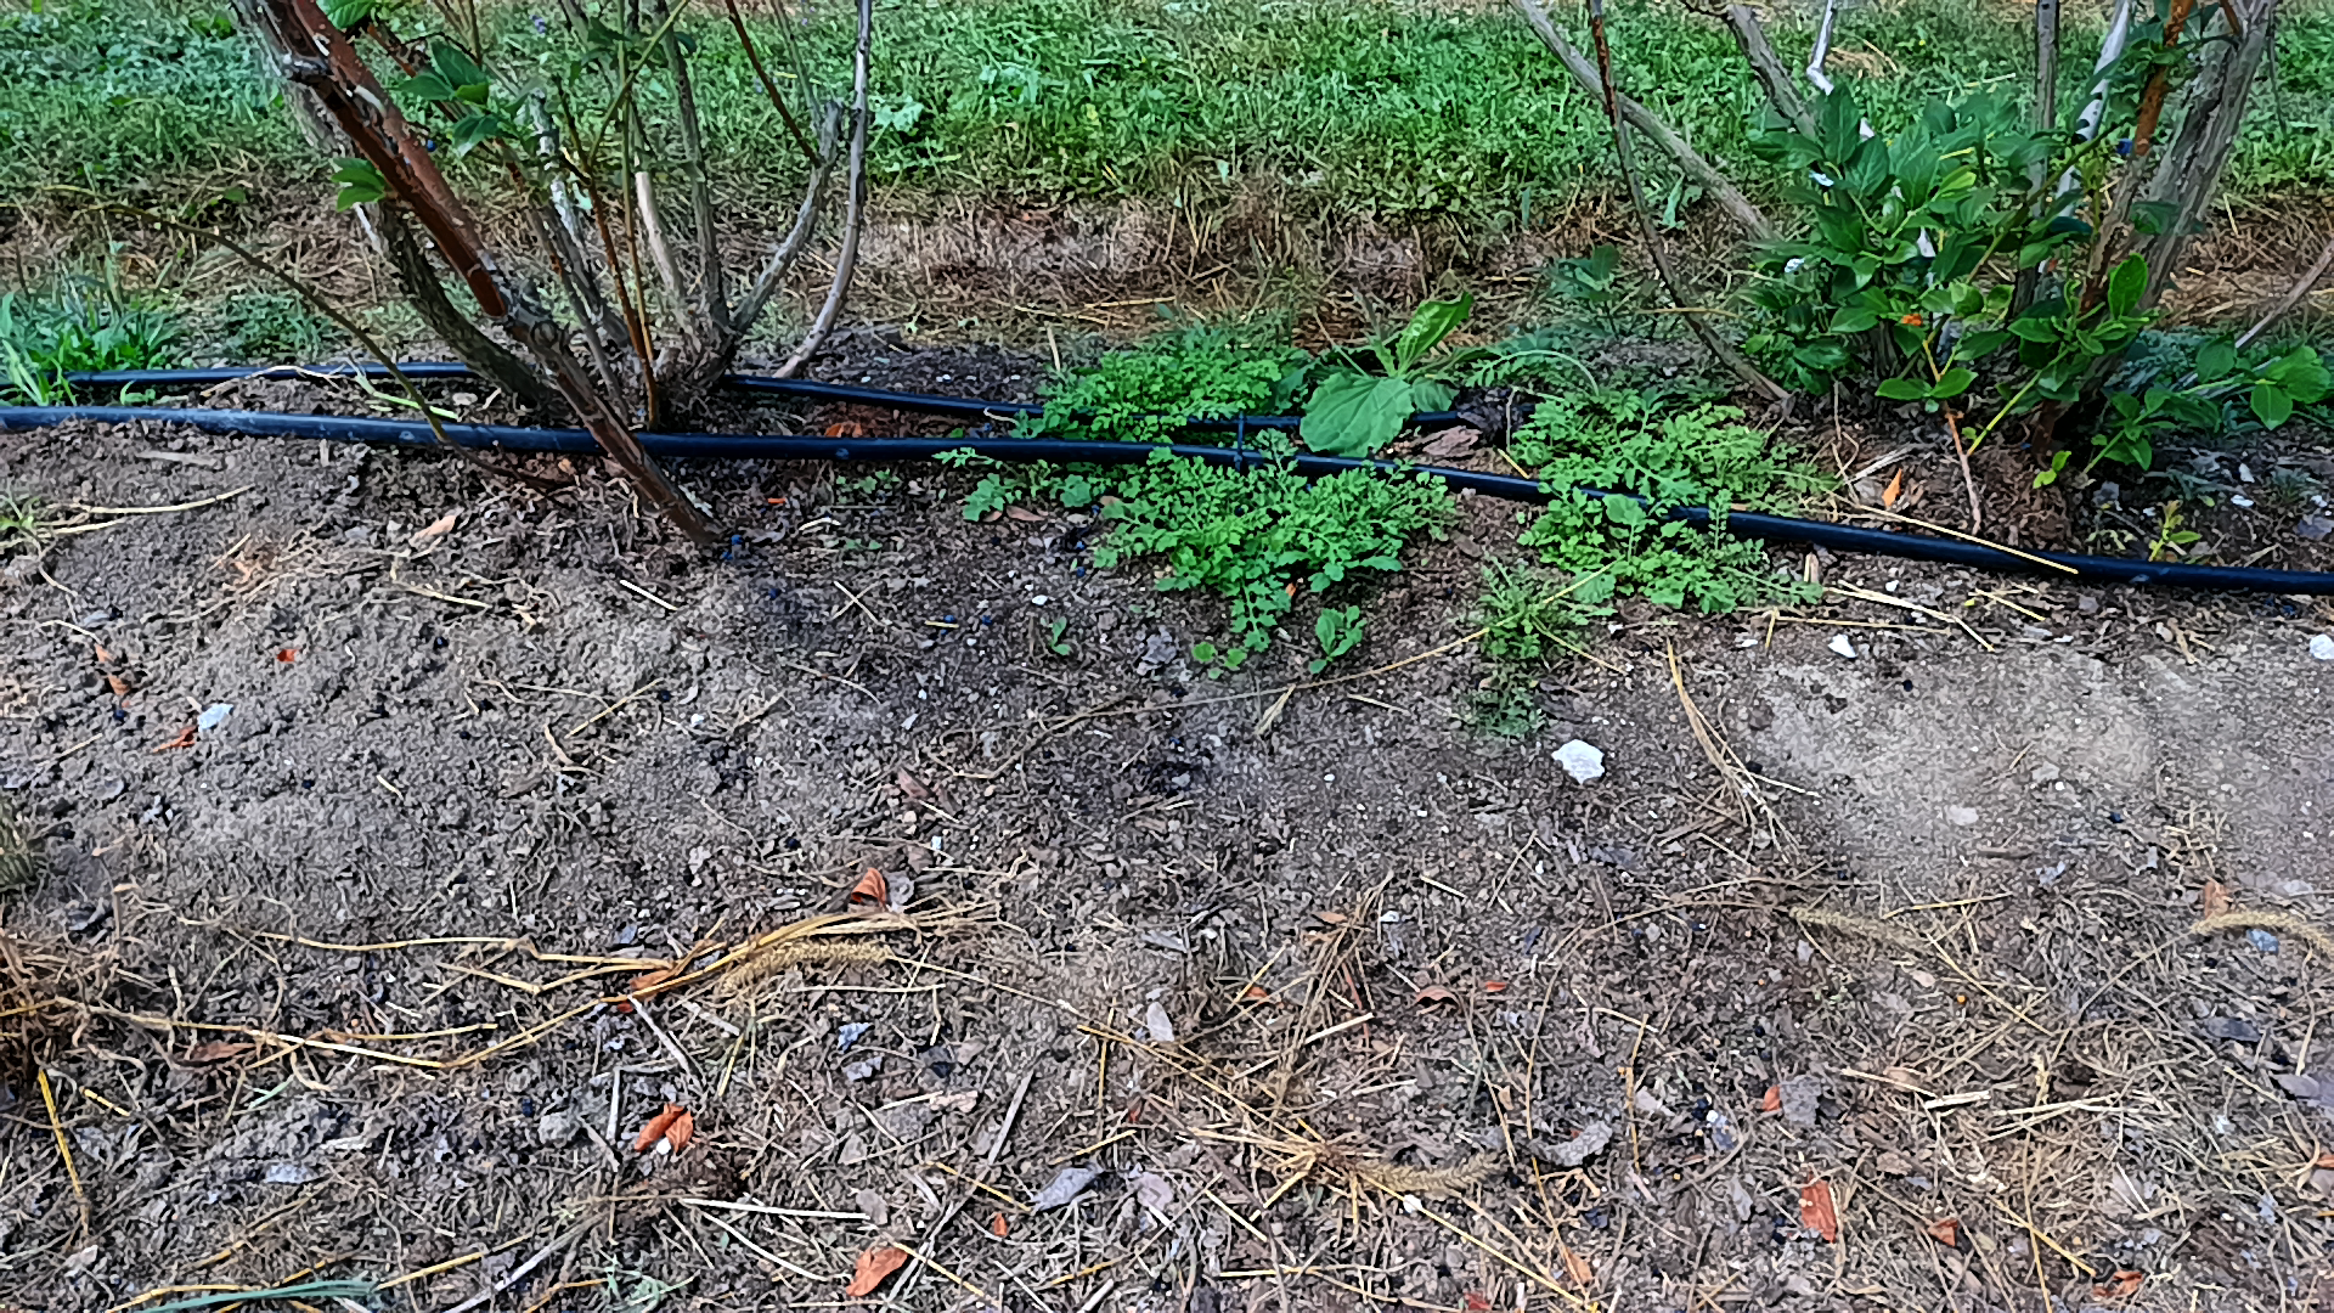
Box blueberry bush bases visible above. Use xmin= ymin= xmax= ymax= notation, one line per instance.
xmin=1629 ymin=119 xmax=2278 ymax=641
xmin=303 ymin=167 xmax=901 ymax=574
